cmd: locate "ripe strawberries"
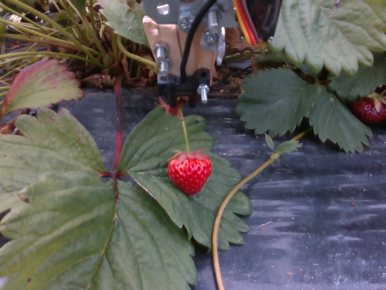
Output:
[167,152,212,196]
[356,92,386,123]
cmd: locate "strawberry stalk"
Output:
[177,108,197,165]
